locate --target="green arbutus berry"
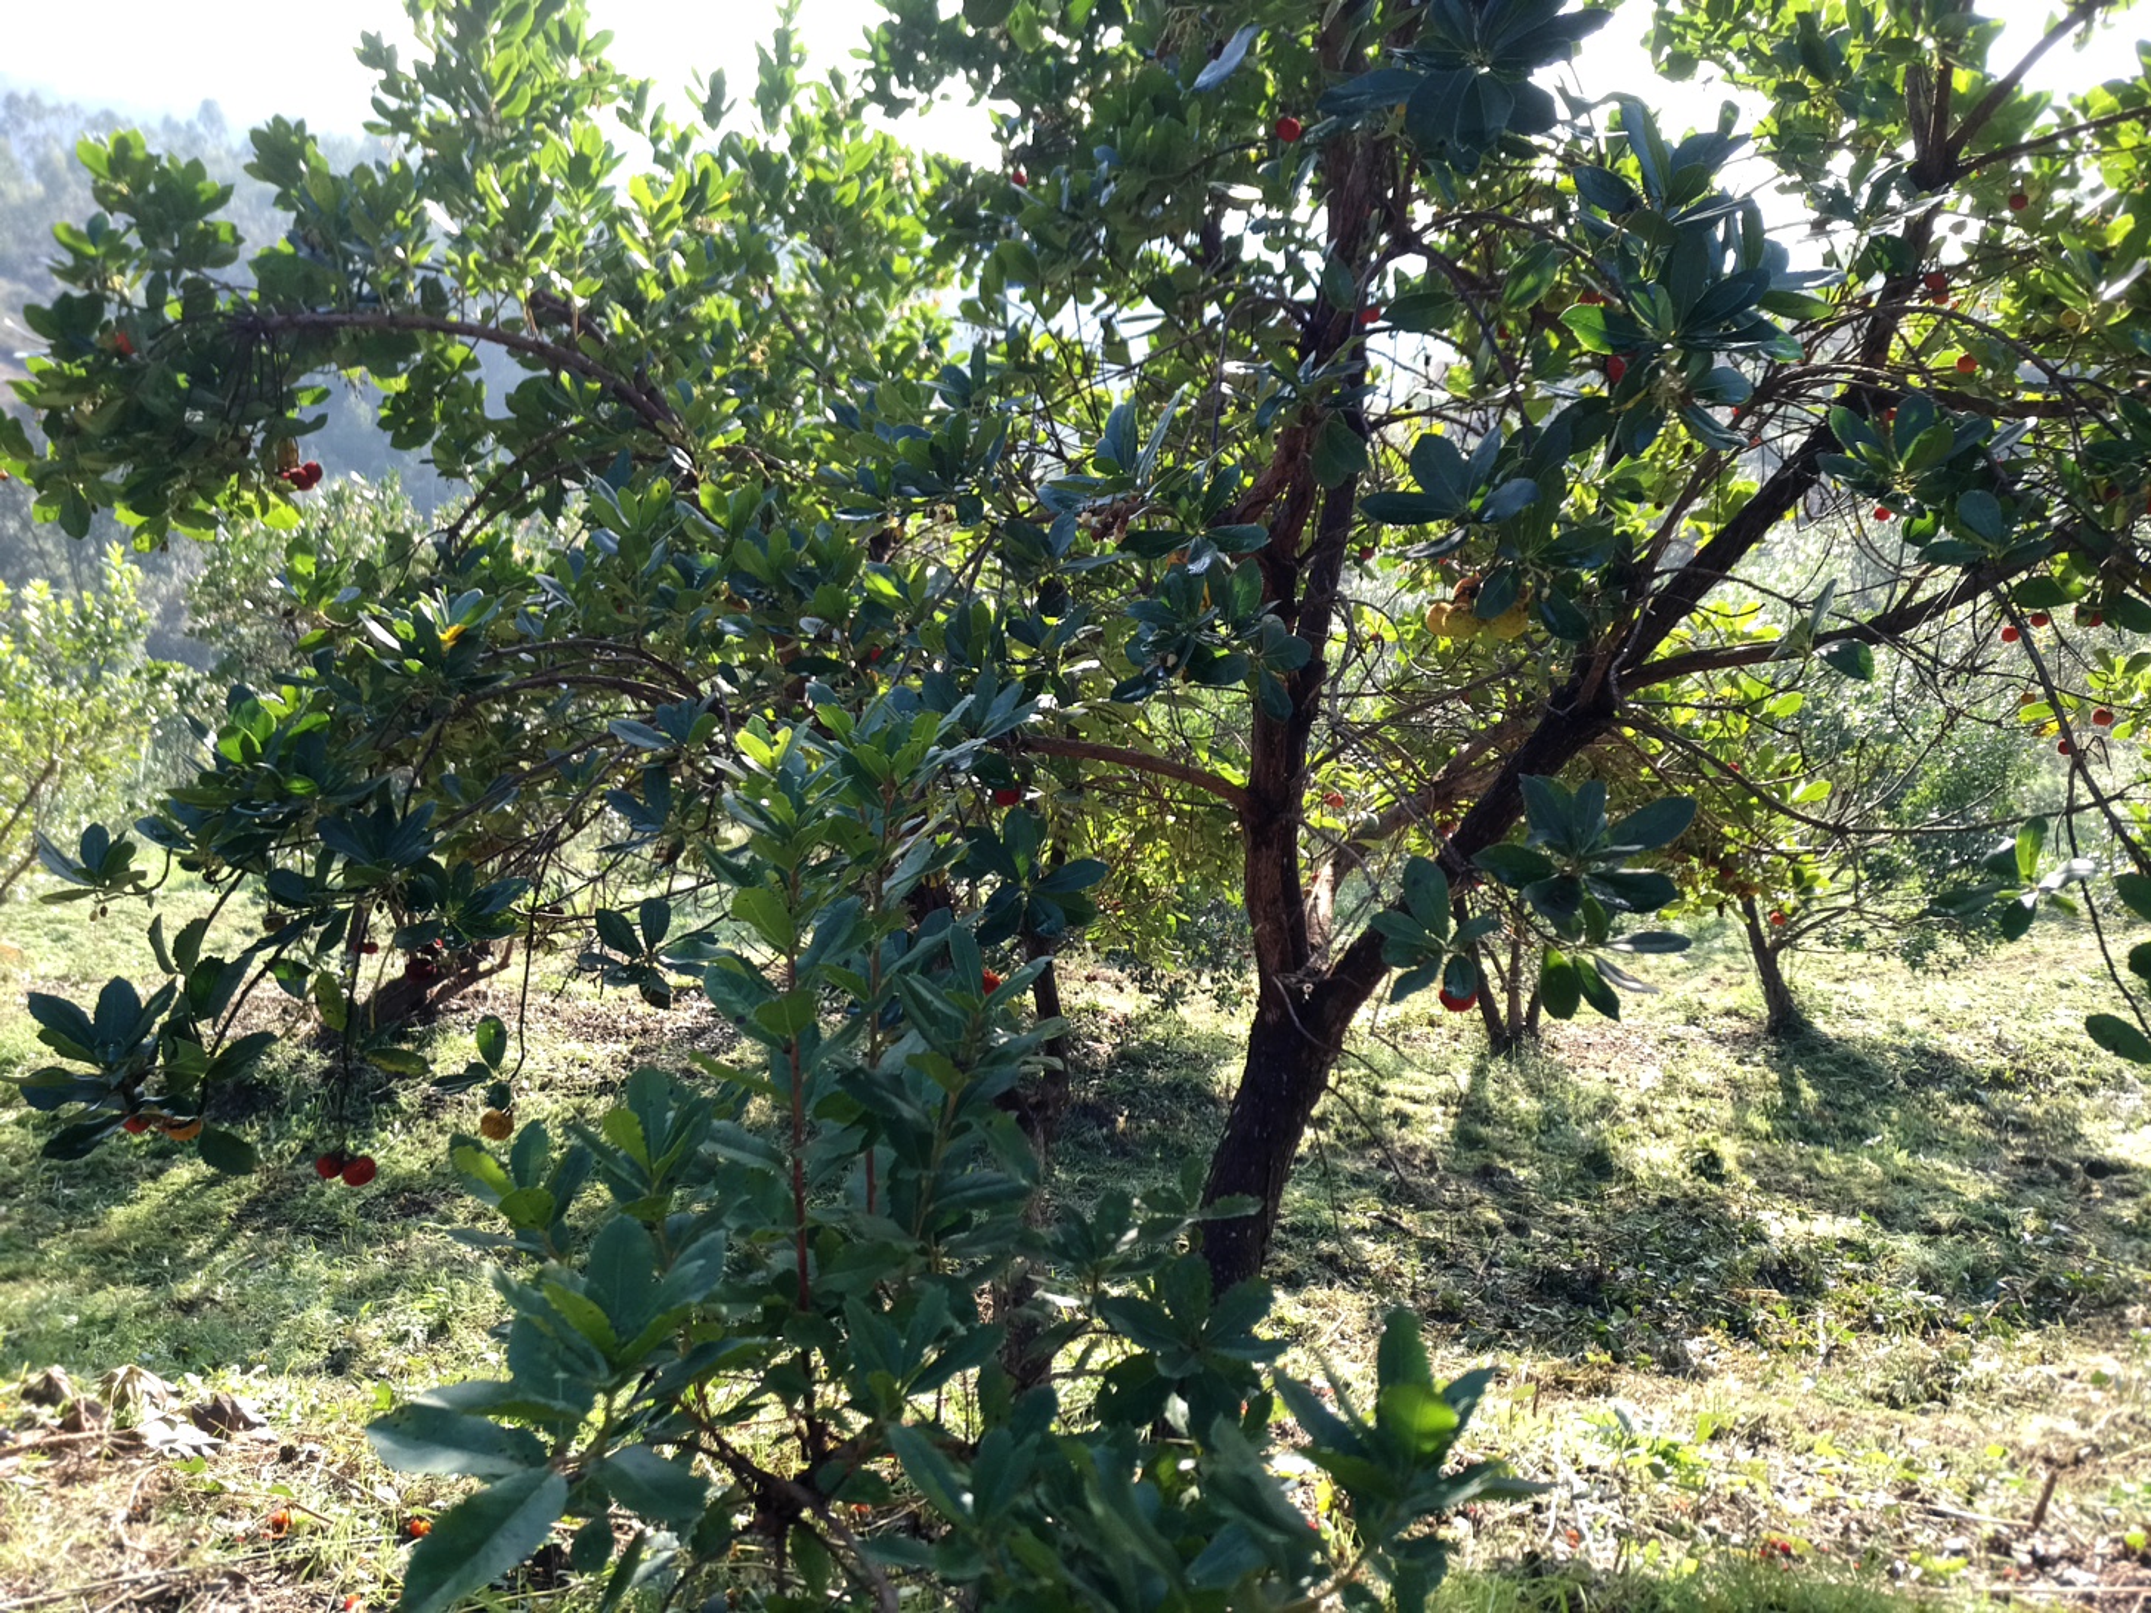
[2061,306,2082,329]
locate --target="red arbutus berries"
[1602,349,1636,382]
[123,1105,148,1138]
[333,1152,375,1187]
[1930,283,1952,304]
[1770,910,1786,926]
[2001,627,2019,643]
[1956,353,1976,374]
[1438,982,1479,1012]
[2091,708,2113,727]
[2075,605,2101,629]
[980,964,1000,994]
[1875,507,1891,521]
[2007,192,2032,213]
[2055,738,2076,756]
[2030,612,2049,627]
[996,782,1024,807]
[1360,306,1383,325]
[1923,271,1943,288]
[314,1151,340,1181]
[1275,113,1302,142]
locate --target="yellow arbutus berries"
[1490,597,1534,640]
[1425,601,1458,637]
[2017,692,2036,705]
[1441,604,1482,638]
[480,1107,517,1143]
[1445,566,1489,605]
[166,1115,202,1140]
